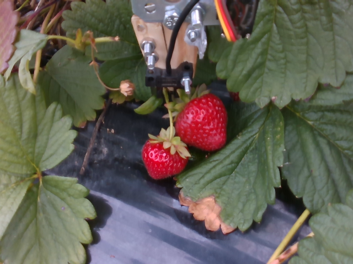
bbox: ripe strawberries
[176,95,229,152]
[141,135,188,180]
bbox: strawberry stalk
[161,85,174,151]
